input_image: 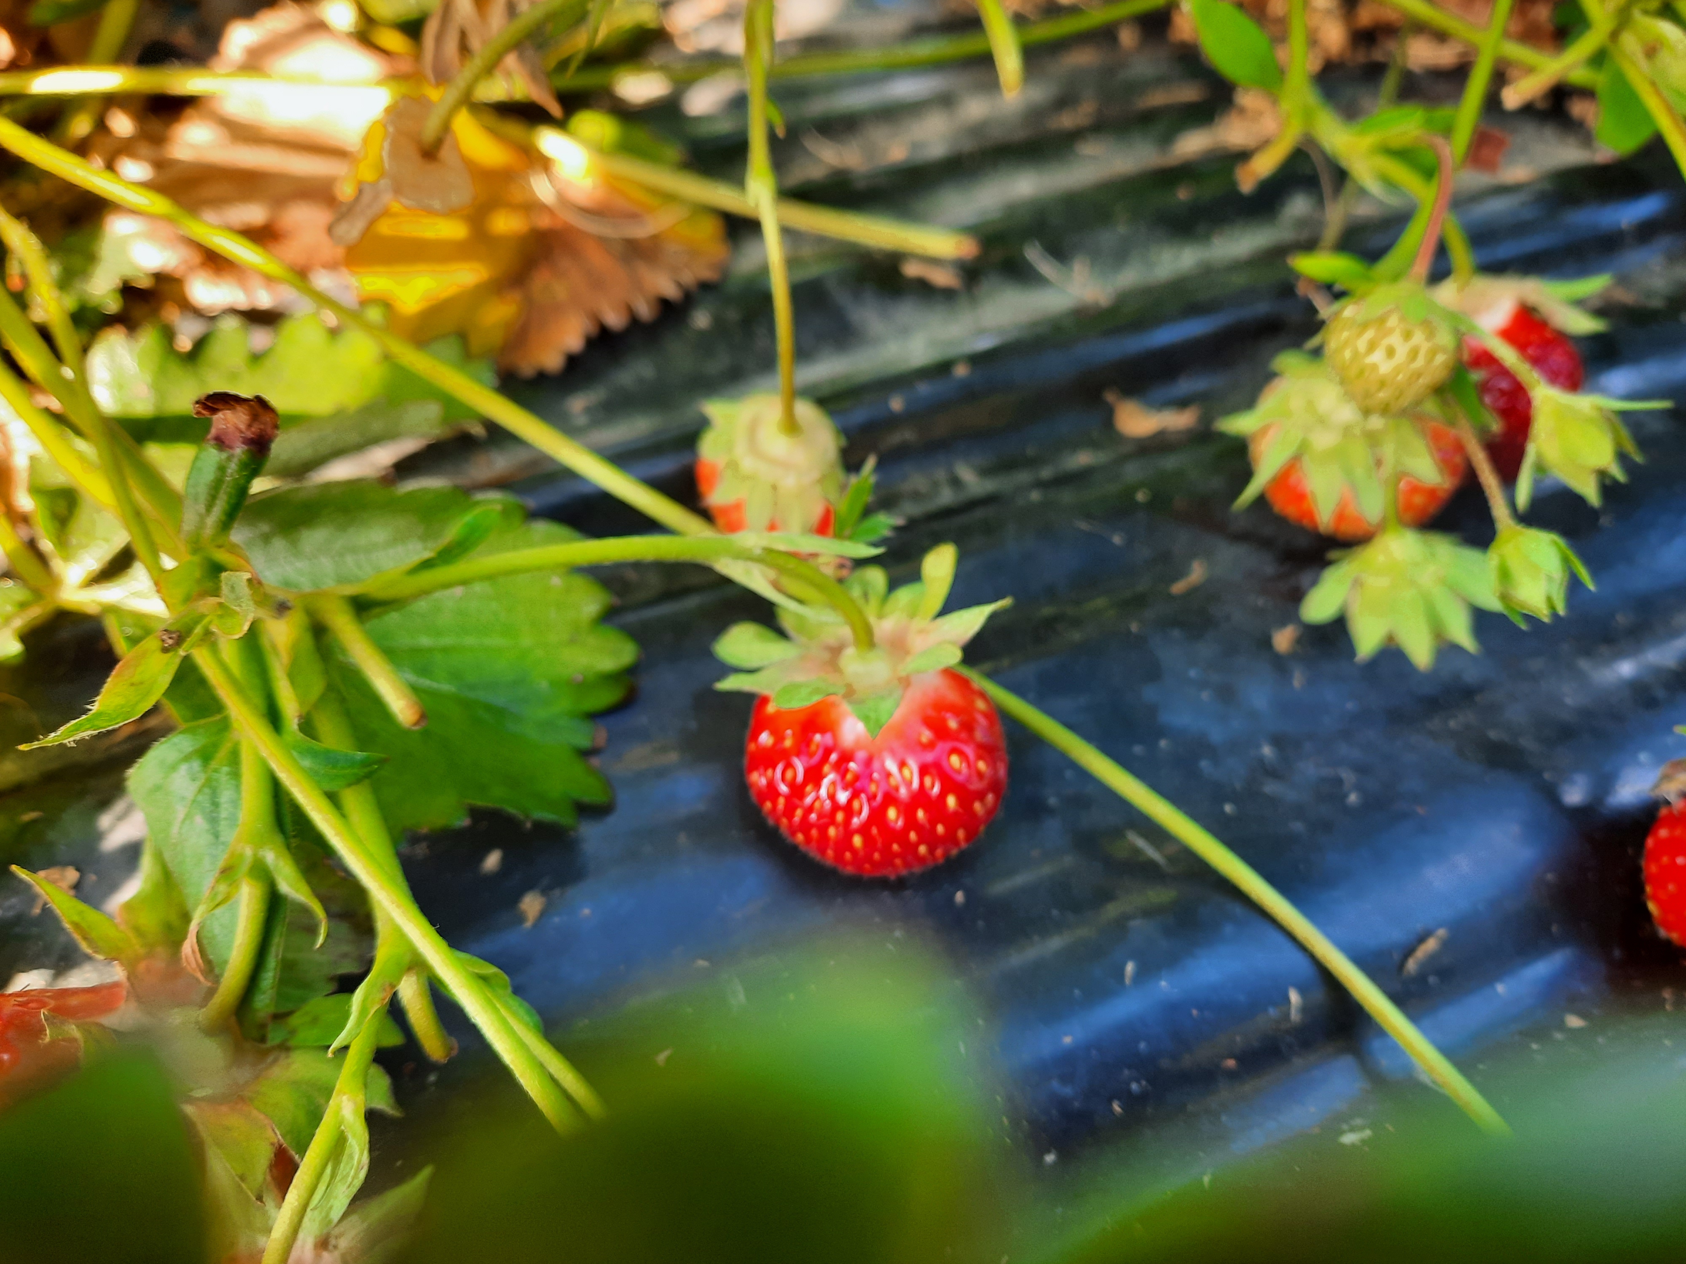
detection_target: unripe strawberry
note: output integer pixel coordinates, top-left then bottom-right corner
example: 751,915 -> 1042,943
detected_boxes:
1331,295 -> 1455,405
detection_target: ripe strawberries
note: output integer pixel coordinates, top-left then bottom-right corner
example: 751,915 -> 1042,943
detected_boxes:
751,644 -> 994,859
1248,373 -> 1450,533
1430,295 -> 1579,455
697,398 -> 869,562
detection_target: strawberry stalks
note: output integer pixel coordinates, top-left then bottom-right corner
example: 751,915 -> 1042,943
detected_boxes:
767,213 -> 800,469
1387,141 -> 1470,308
754,531 -> 907,716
